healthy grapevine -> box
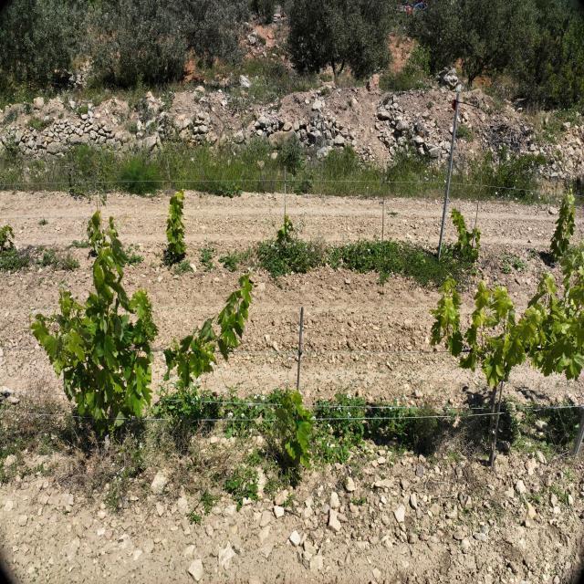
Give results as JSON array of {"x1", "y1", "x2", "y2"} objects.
[{"x1": 25, "y1": 219, "x2": 258, "y2": 454}]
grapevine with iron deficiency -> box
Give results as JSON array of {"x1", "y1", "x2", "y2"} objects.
[{"x1": 425, "y1": 275, "x2": 584, "y2": 482}]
